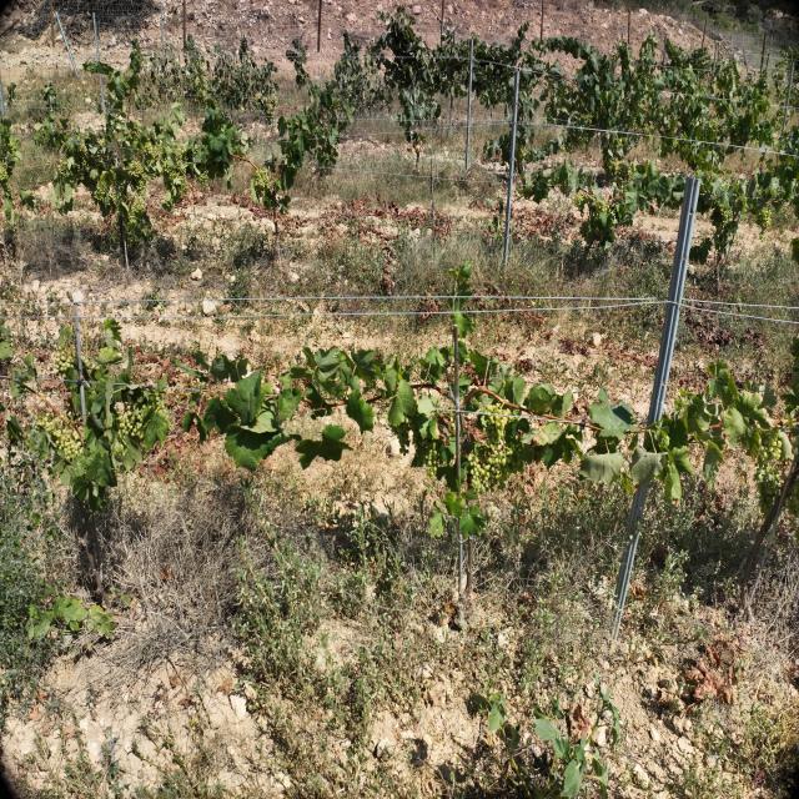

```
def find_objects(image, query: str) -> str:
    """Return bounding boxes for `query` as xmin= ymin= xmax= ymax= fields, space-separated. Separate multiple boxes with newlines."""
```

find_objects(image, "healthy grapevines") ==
xmin=675 ymin=341 xmax=799 ymax=631
xmin=171 ymin=322 xmax=689 ymax=653
xmin=0 ymin=310 xmax=172 ymax=612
